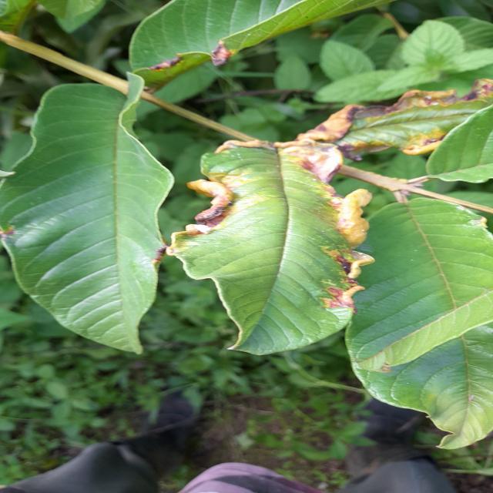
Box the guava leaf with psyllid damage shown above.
[156,134,384,359]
